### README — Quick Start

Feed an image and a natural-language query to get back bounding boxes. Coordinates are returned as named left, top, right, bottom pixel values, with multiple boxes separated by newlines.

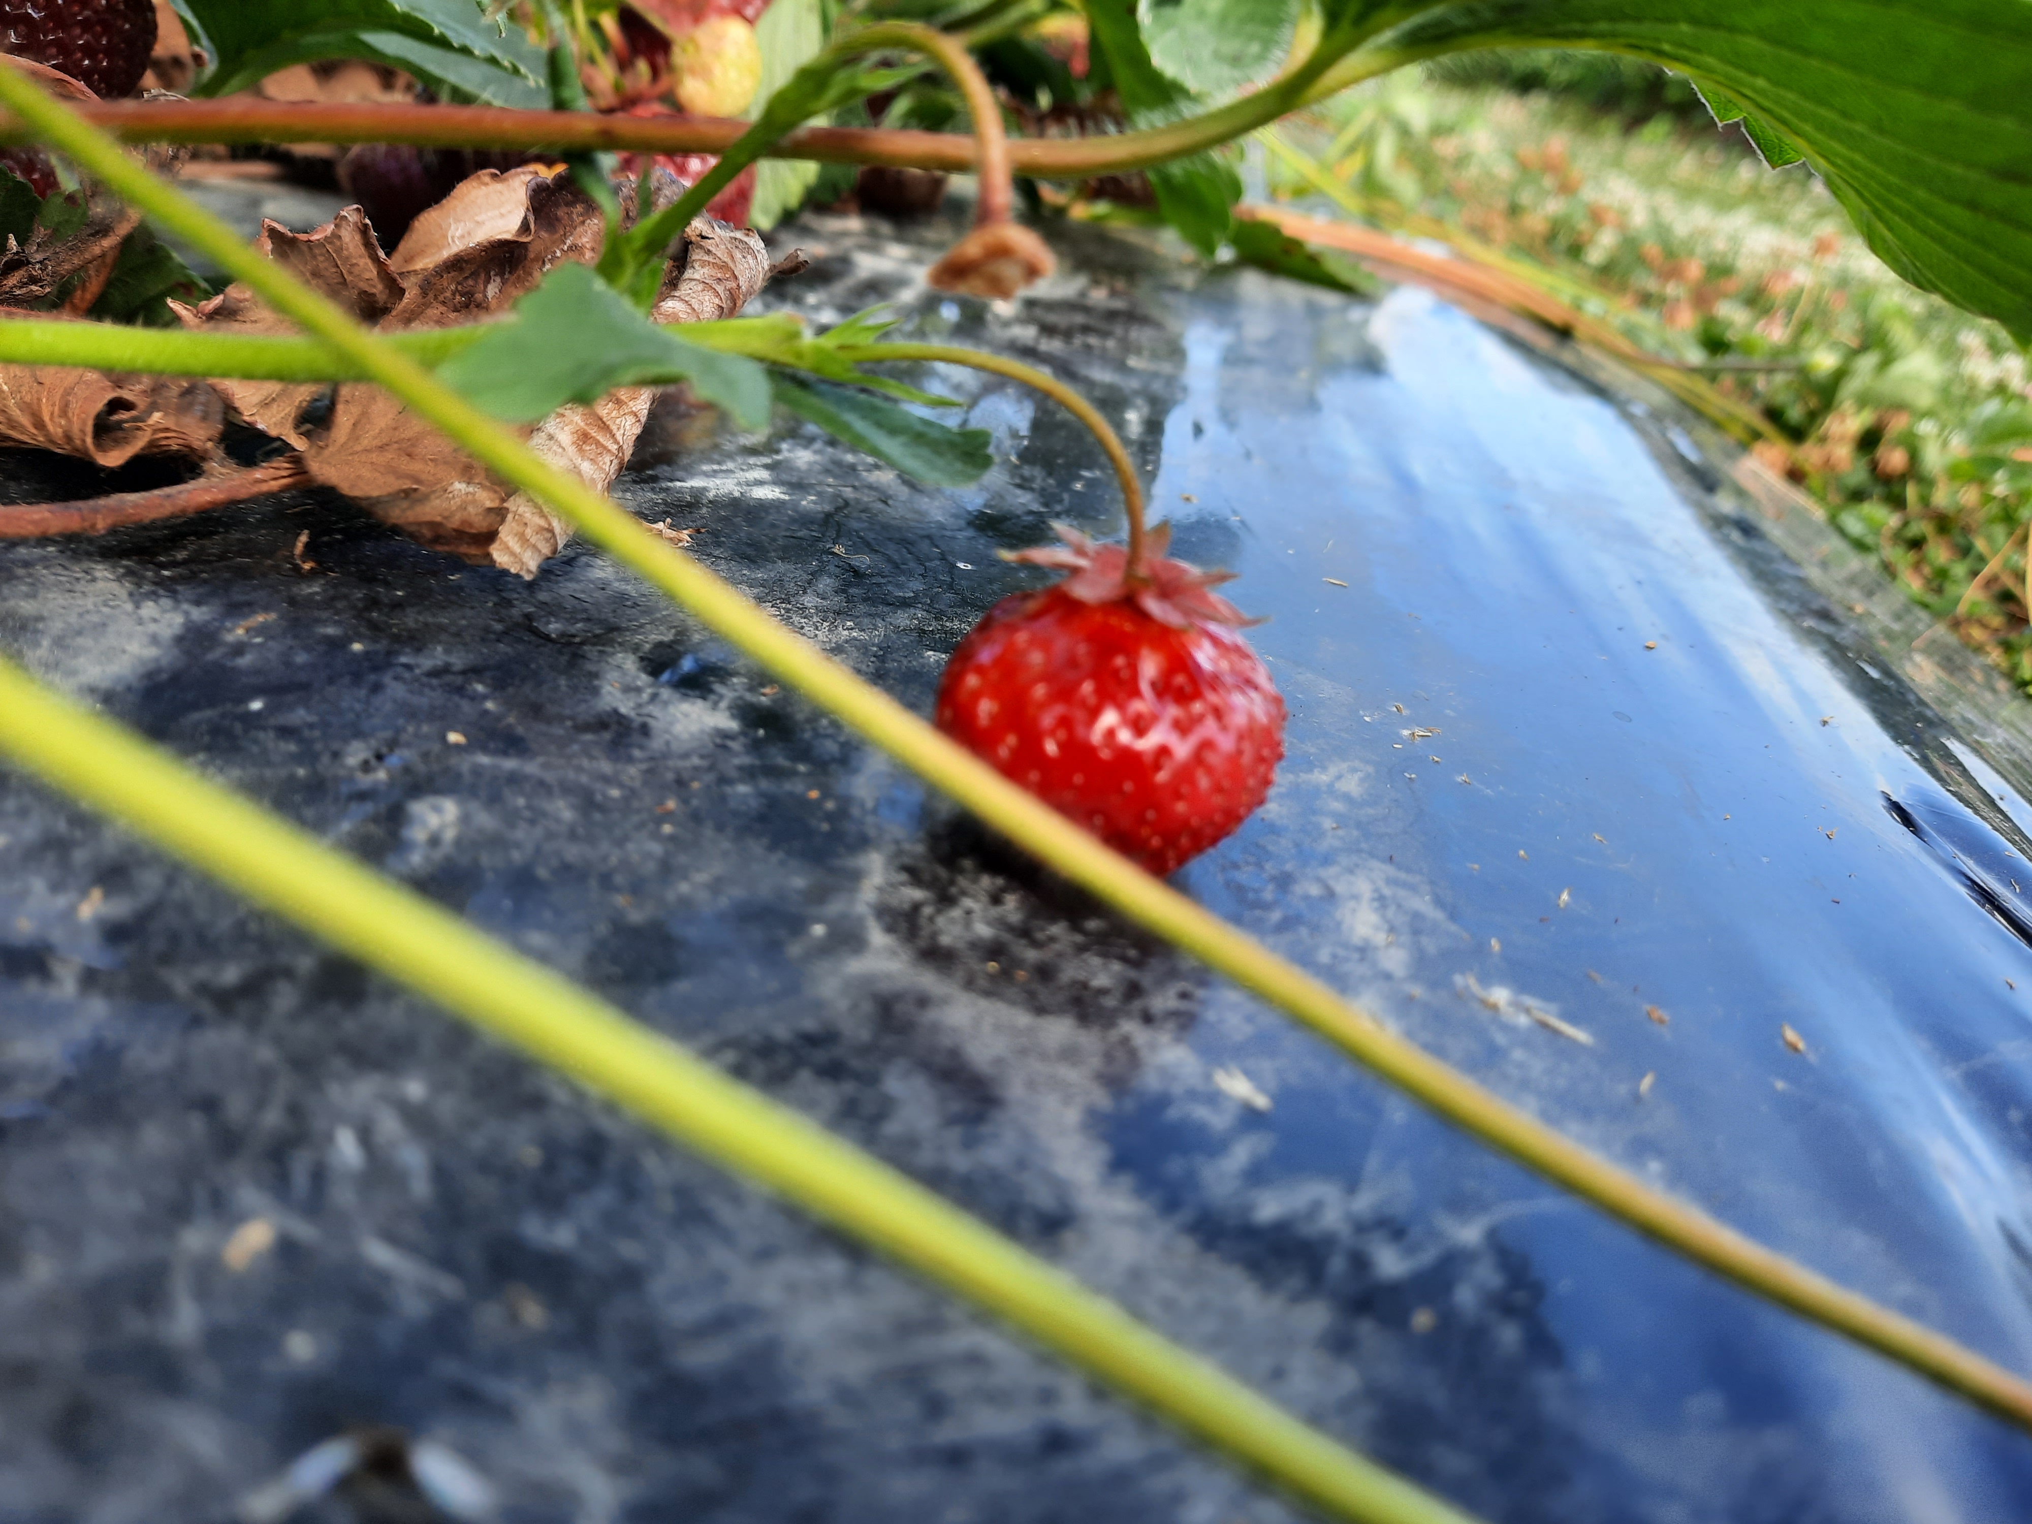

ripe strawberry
left=960, top=573, right=1286, bottom=856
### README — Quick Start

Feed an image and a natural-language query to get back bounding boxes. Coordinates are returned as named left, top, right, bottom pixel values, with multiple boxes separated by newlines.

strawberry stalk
left=958, top=330, right=1168, bottom=627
